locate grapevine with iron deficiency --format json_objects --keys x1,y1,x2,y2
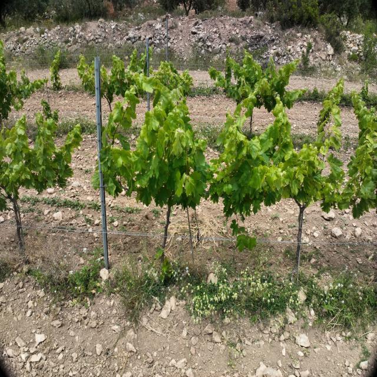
[{"x1": 211, "y1": 96, "x2": 377, "y2": 289}]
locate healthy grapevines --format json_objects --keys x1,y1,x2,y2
[
  {"x1": 97, "y1": 83, "x2": 217, "y2": 279},
  {"x1": 0, "y1": 103, "x2": 82, "y2": 257}
]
